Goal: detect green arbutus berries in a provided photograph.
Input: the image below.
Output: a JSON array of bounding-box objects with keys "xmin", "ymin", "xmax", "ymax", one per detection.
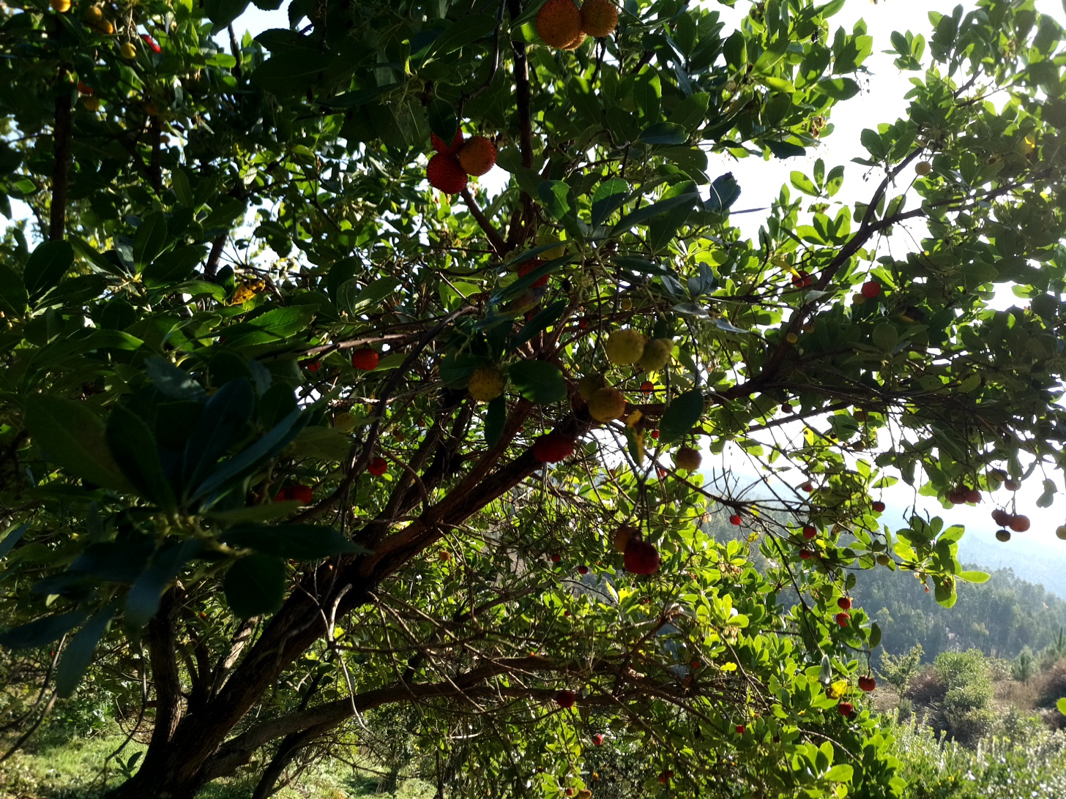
[
  {"xmin": 333, "ymin": 412, "xmax": 359, "ymax": 432},
  {"xmin": 1056, "ymin": 525, "xmax": 1066, "ymax": 540},
  {"xmin": 606, "ymin": 328, "xmax": 645, "ymax": 365},
  {"xmin": 876, "ymin": 554, "xmax": 890, "ymax": 566},
  {"xmin": 85, "ymin": 97, "xmax": 100, "ymax": 112},
  {"xmin": 853, "ymin": 411, "xmax": 869, "ymax": 423},
  {"xmin": 996, "ymin": 529, "xmax": 1011, "ymax": 542},
  {"xmin": 786, "ymin": 332, "xmax": 798, "ymax": 343},
  {"xmin": 119, "ymin": 41, "xmax": 137, "ymax": 59},
  {"xmin": 853, "ymin": 293, "xmax": 865, "ymax": 304},
  {"xmin": 536, "ymin": 234, "xmax": 566, "ymax": 261},
  {"xmin": 915, "ymin": 161, "xmax": 932, "ymax": 175},
  {"xmin": 852, "ymin": 440, "xmax": 866, "ymax": 451},
  {"xmin": 642, "ymin": 339, "xmax": 670, "ymax": 369}
]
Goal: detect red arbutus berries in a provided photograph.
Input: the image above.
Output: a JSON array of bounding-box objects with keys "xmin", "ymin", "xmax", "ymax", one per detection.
[
  {"xmin": 427, "ymin": 153, "xmax": 466, "ymax": 194},
  {"xmin": 518, "ymin": 259, "xmax": 549, "ymax": 288},
  {"xmin": 1010, "ymin": 514, "xmax": 1031, "ymax": 532},
  {"xmin": 691, "ymin": 659, "xmax": 700, "ymax": 669},
  {"xmin": 368, "ymin": 457, "xmax": 388, "ymax": 475},
  {"xmin": 624, "ymin": 541, "xmax": 659, "ymax": 574},
  {"xmin": 949, "ymin": 491, "xmax": 966, "ymax": 504},
  {"xmin": 872, "ymin": 501, "xmax": 886, "ymax": 512},
  {"xmin": 552, "ymin": 554, "xmax": 560, "ymax": 562},
  {"xmin": 564, "ymin": 611, "xmax": 570, "ymax": 615},
  {"xmin": 735, "ymin": 724, "xmax": 744, "ymax": 733},
  {"xmin": 651, "ymin": 430, "xmax": 660, "ymax": 438},
  {"xmin": 730, "ymin": 515, "xmax": 741, "ymax": 525},
  {"xmin": 578, "ymin": 566, "xmax": 588, "ymax": 574},
  {"xmin": 966, "ymin": 490, "xmax": 982, "ymax": 503},
  {"xmin": 308, "ymin": 362, "xmax": 321, "ymax": 372},
  {"xmin": 292, "ymin": 485, "xmax": 313, "ymax": 505},
  {"xmin": 803, "ymin": 526, "xmax": 817, "ymax": 538},
  {"xmin": 555, "ymin": 690, "xmax": 575, "ymax": 708},
  {"xmin": 858, "ymin": 674, "xmax": 876, "ymax": 692},
  {"xmin": 561, "ymin": 440, "xmax": 577, "ymax": 457},
  {"xmin": 579, "ymin": 319, "xmax": 589, "ymax": 328},
  {"xmin": 591, "ymin": 733, "xmax": 603, "ymax": 745},
  {"xmin": 837, "ymin": 702, "xmax": 852, "ymax": 716},
  {"xmin": 792, "ymin": 270, "xmax": 812, "ymax": 289},
  {"xmin": 666, "ymin": 770, "xmax": 674, "ymax": 778},
  {"xmin": 426, "ymin": 123, "xmax": 464, "ymax": 154},
  {"xmin": 837, "ymin": 596, "xmax": 852, "ymax": 609},
  {"xmin": 350, "ymin": 346, "xmax": 380, "ymax": 370},
  {"xmin": 802, "ymin": 483, "xmax": 813, "ymax": 491},
  {"xmin": 861, "ymin": 279, "xmax": 881, "ymax": 298},
  {"xmin": 798, "ymin": 549, "xmax": 810, "ymax": 559},
  {"xmin": 460, "ymin": 137, "xmax": 497, "ymax": 180},
  {"xmin": 996, "ymin": 513, "xmax": 1012, "ymax": 526},
  {"xmin": 835, "ymin": 612, "xmax": 852, "ymax": 627},
  {"xmin": 545, "ymin": 443, "xmax": 563, "ymax": 462},
  {"xmin": 565, "ymin": 788, "xmax": 573, "ymax": 796},
  {"xmin": 657, "ymin": 773, "xmax": 667, "ymax": 783},
  {"xmin": 641, "ymin": 381, "xmax": 653, "ymax": 393},
  {"xmin": 533, "ymin": 445, "xmax": 547, "ymax": 464}
]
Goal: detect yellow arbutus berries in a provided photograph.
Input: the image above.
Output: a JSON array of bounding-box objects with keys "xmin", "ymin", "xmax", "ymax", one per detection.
[
  {"xmin": 580, "ymin": 1, "xmax": 620, "ymax": 38},
  {"xmin": 584, "ymin": 788, "xmax": 592, "ymax": 797},
  {"xmin": 677, "ymin": 447, "xmax": 702, "ymax": 470},
  {"xmin": 537, "ymin": 0, "xmax": 583, "ymax": 48},
  {"xmin": 97, "ymin": 19, "xmax": 115, "ymax": 35},
  {"xmin": 50, "ymin": 0, "xmax": 73, "ymax": 12},
  {"xmin": 83, "ymin": 5, "xmax": 103, "ymax": 24},
  {"xmin": 440, "ymin": 551, "xmax": 450, "ymax": 561},
  {"xmin": 588, "ymin": 387, "xmax": 626, "ymax": 423},
  {"xmin": 592, "ymin": 772, "xmax": 599, "ymax": 781},
  {"xmin": 621, "ymin": 300, "xmax": 632, "ymax": 310},
  {"xmin": 396, "ymin": 434, "xmax": 404, "ymax": 442},
  {"xmin": 579, "ymin": 374, "xmax": 609, "ymax": 400},
  {"xmin": 467, "ymin": 367, "xmax": 503, "ymax": 400},
  {"xmin": 615, "ymin": 527, "xmax": 640, "ymax": 552}
]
